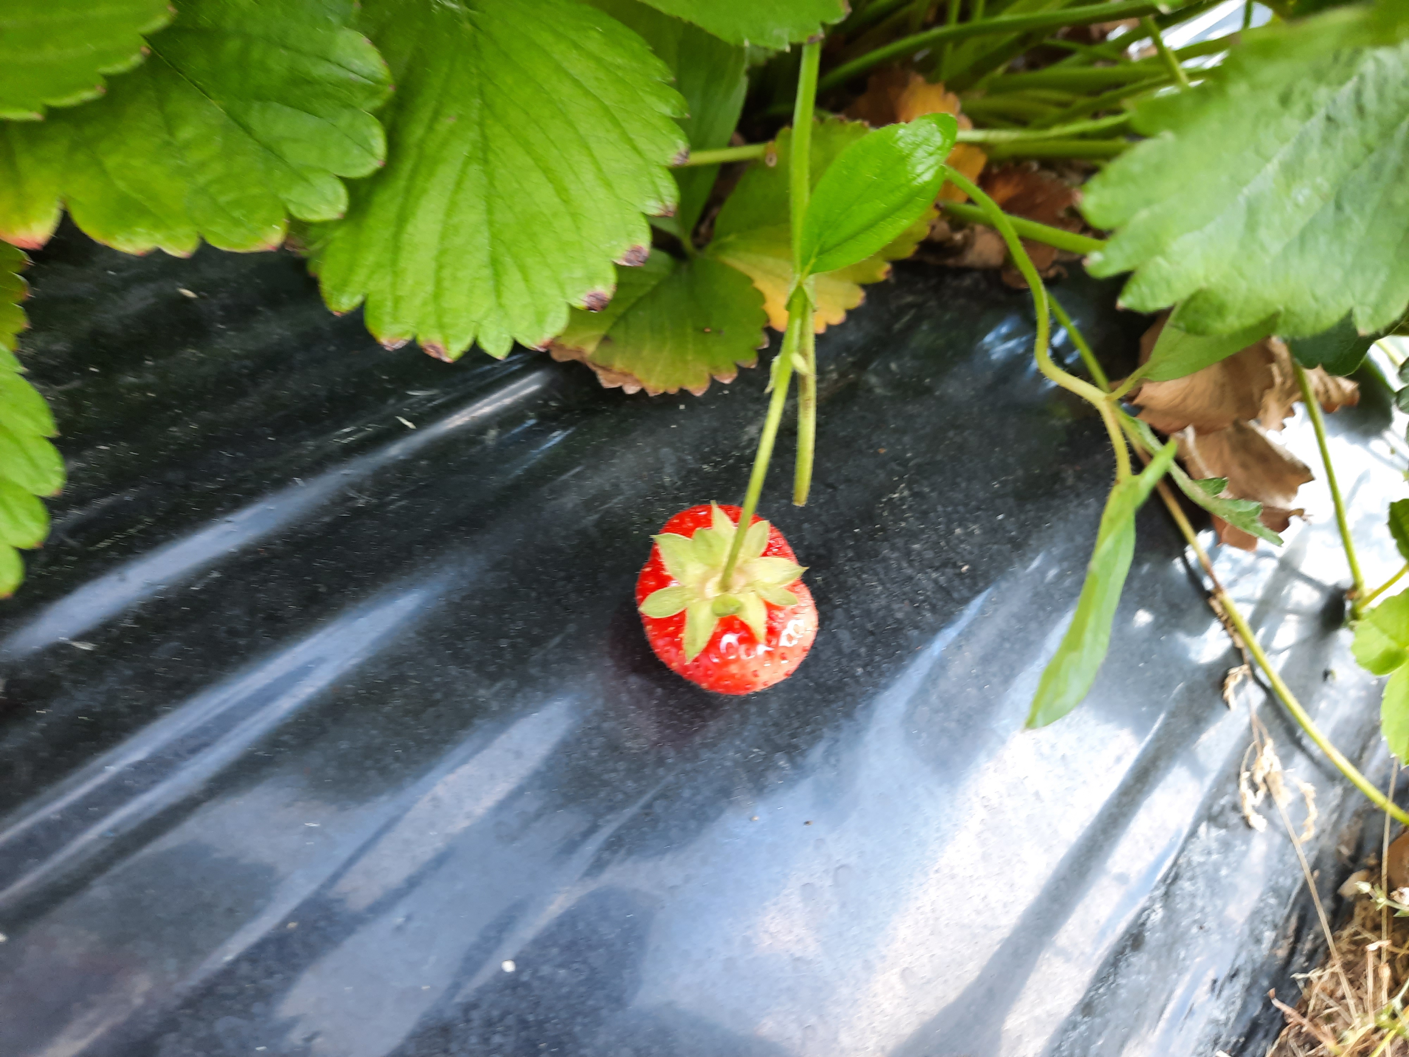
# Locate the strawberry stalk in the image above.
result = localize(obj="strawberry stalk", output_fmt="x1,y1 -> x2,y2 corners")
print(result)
697,342 -> 811,617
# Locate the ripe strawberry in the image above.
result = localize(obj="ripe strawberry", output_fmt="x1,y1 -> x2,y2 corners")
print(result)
641,508 -> 824,687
